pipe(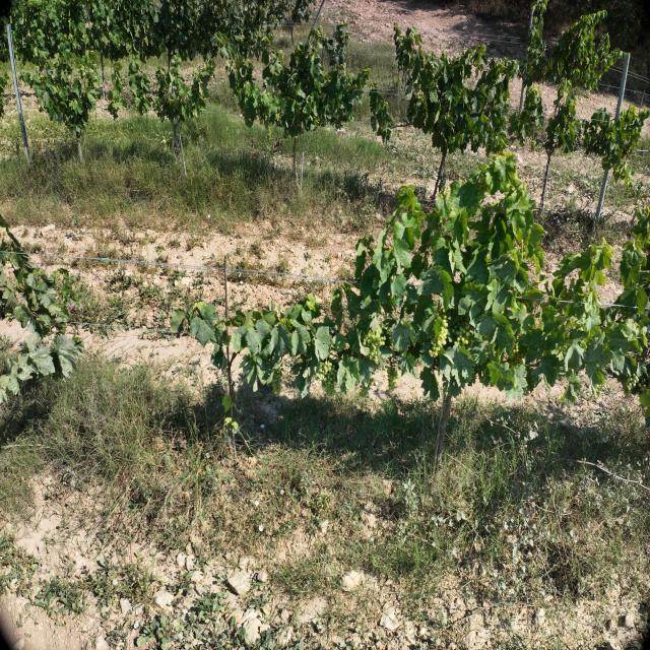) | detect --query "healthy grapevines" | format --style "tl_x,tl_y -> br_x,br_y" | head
168,284 -> 336,466
334,151 -> 621,495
